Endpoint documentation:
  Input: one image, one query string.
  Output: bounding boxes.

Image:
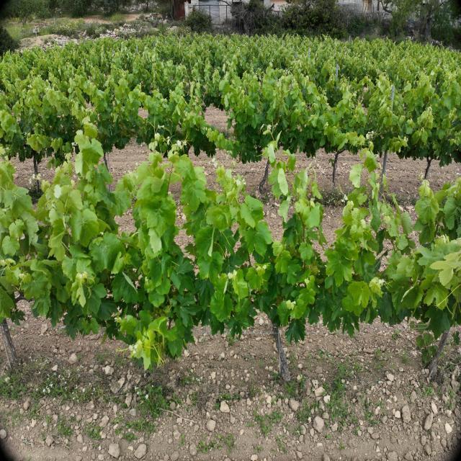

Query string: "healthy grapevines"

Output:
[169,152,461,398]
[0,124,166,385]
